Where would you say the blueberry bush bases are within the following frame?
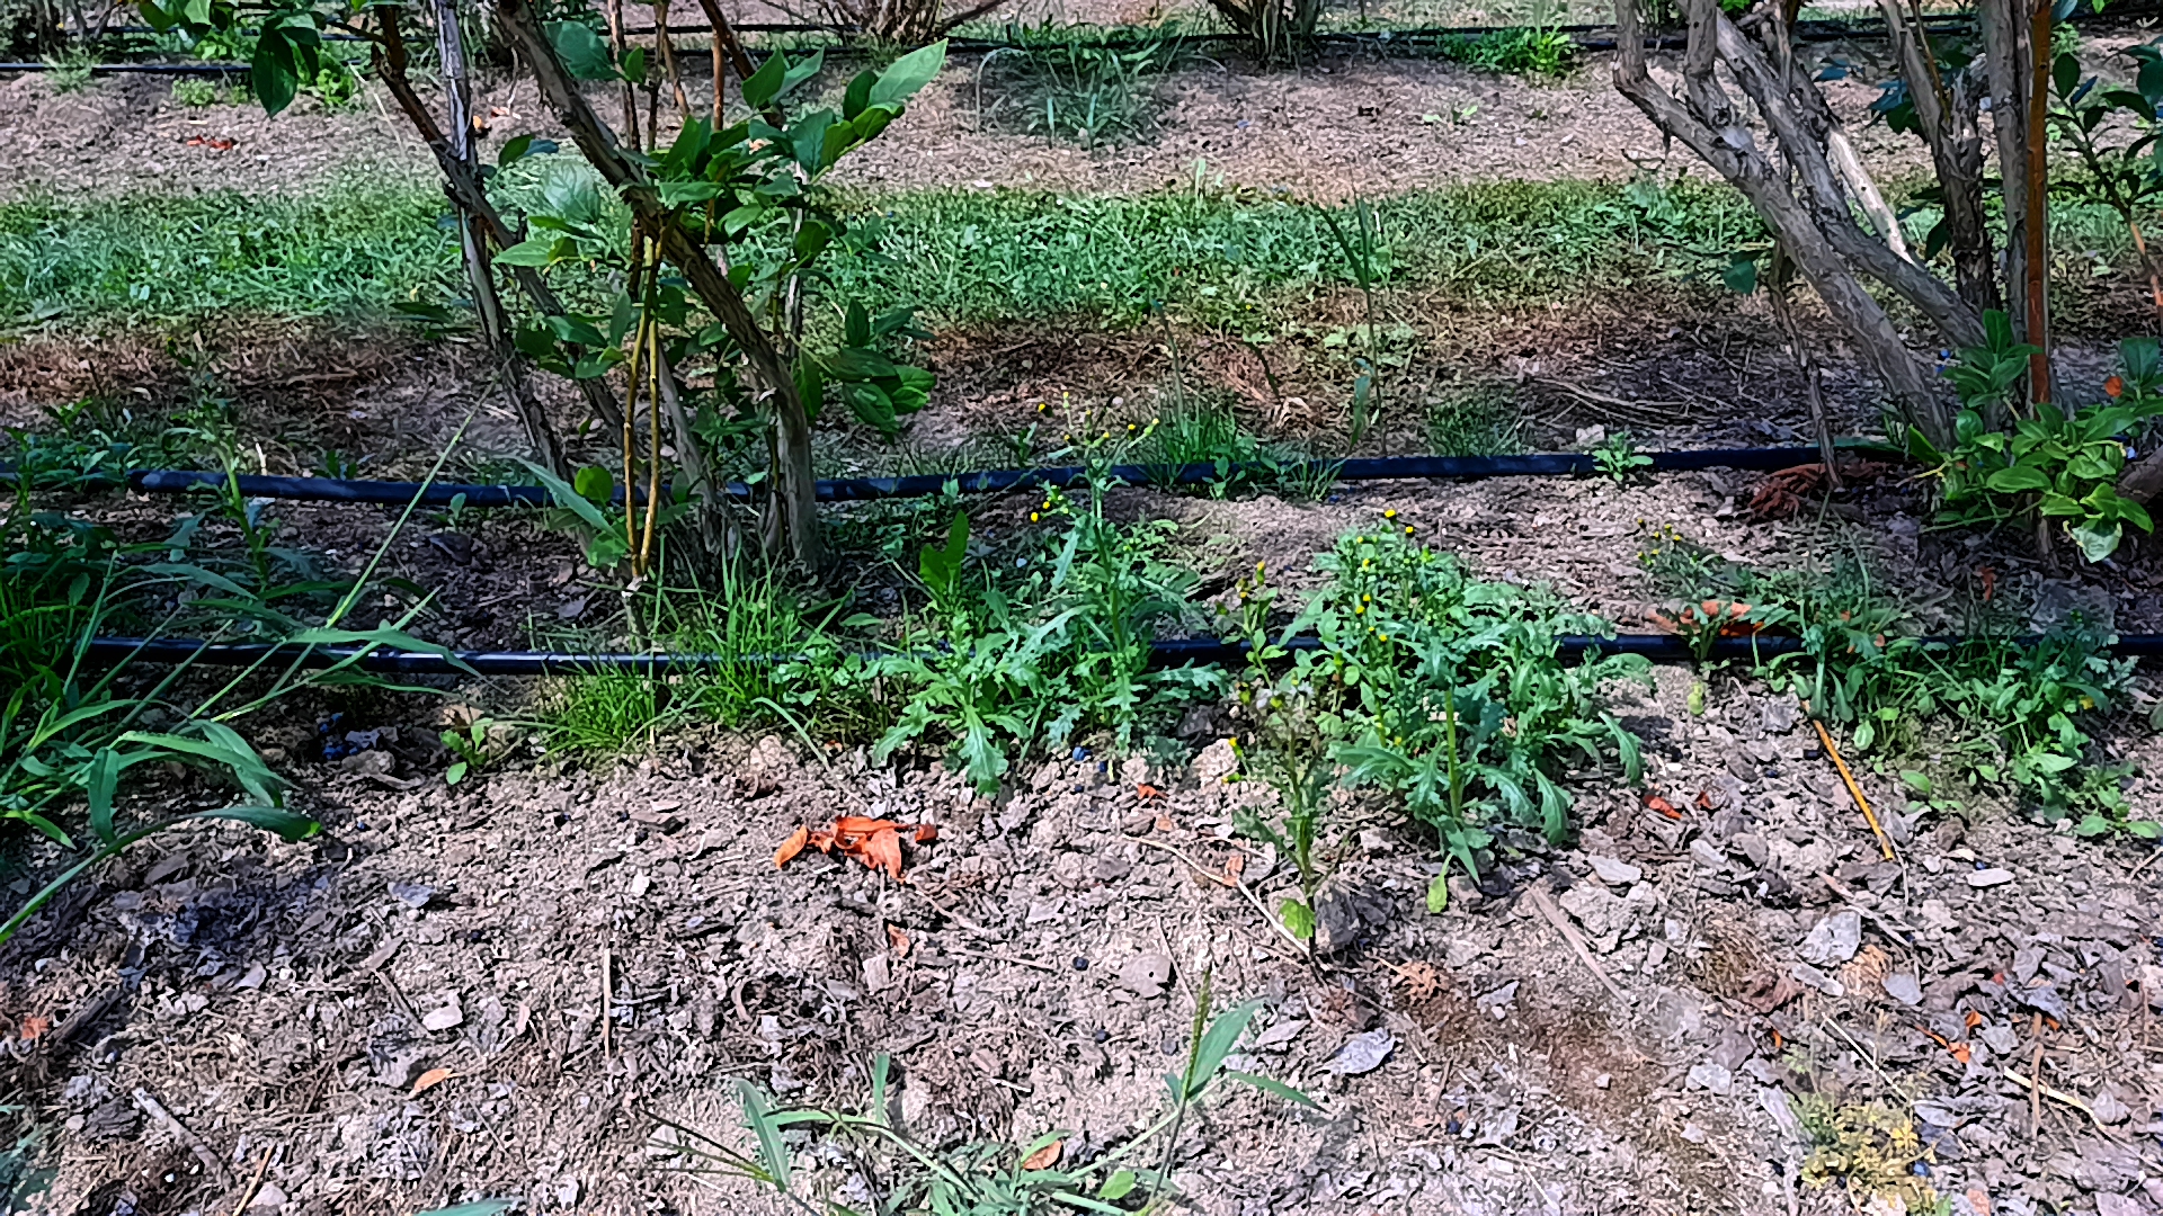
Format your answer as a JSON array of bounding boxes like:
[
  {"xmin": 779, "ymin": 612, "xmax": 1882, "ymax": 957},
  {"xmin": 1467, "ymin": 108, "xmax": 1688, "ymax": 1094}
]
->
[
  {"xmin": 470, "ymin": 336, "xmax": 867, "ymax": 740},
  {"xmin": 1764, "ymin": 223, "xmax": 2140, "ymax": 602},
  {"xmin": 1182, "ymin": 0, "xmax": 1364, "ymax": 85}
]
